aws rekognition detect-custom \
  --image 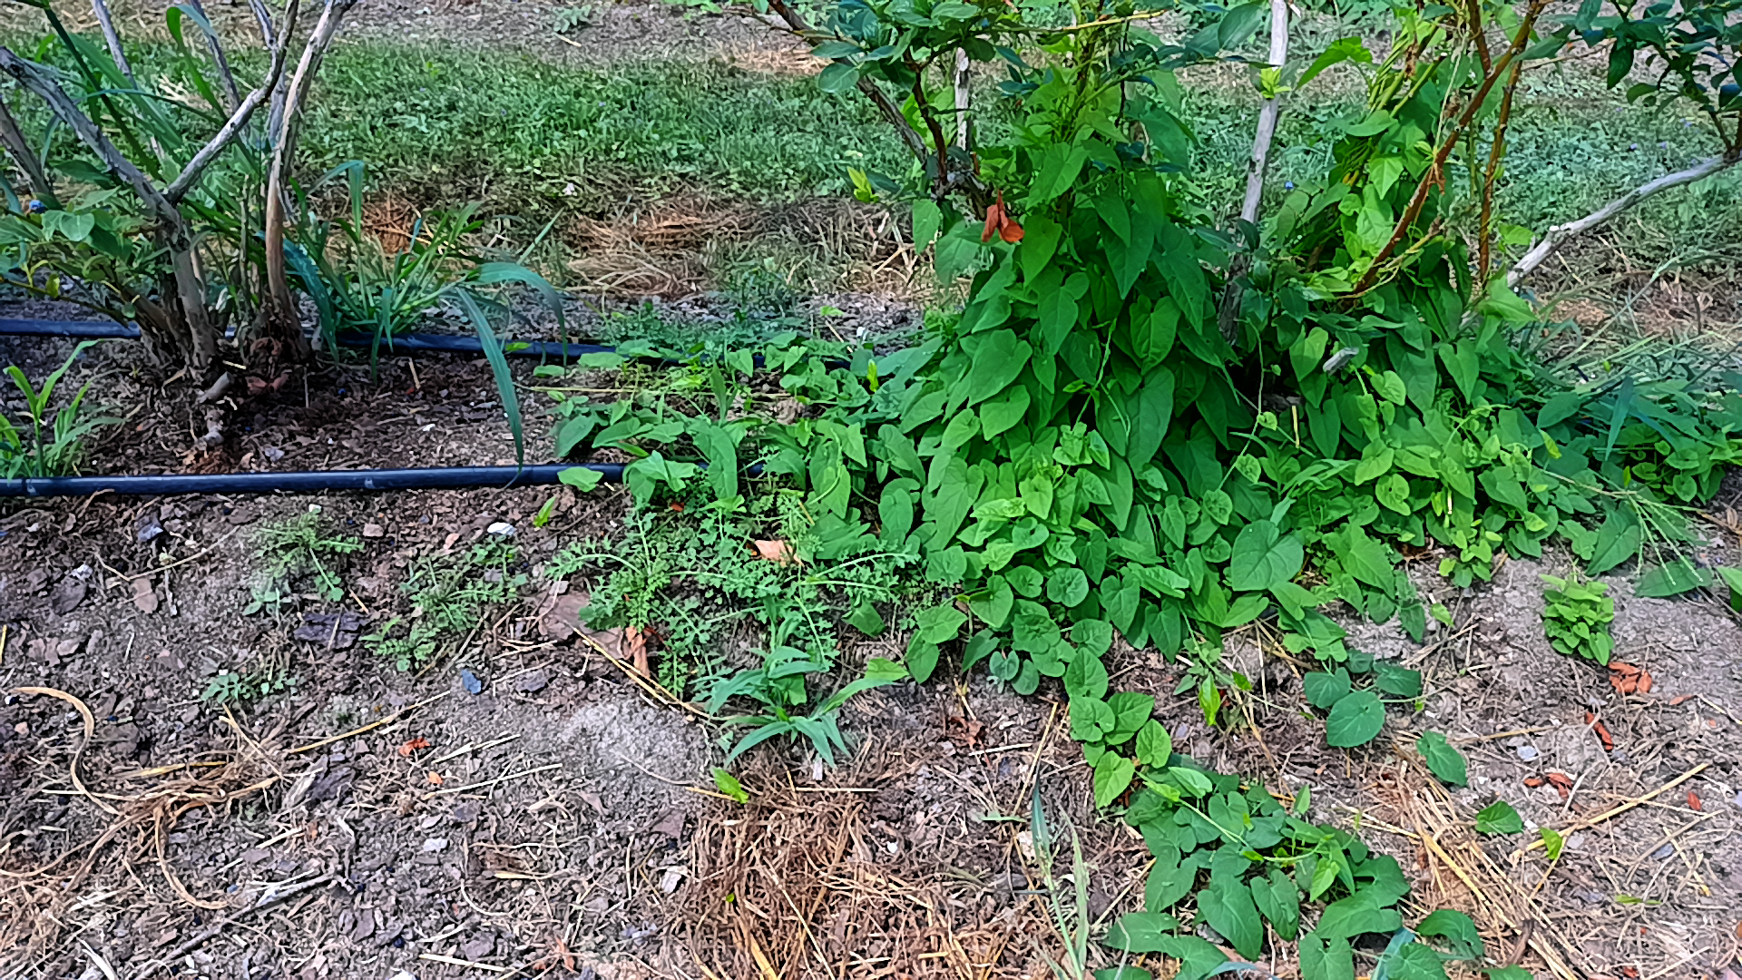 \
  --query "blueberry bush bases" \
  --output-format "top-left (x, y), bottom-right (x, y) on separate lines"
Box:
top-left (935, 45), bottom-right (1569, 566)
top-left (28, 174), bottom-right (340, 489)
